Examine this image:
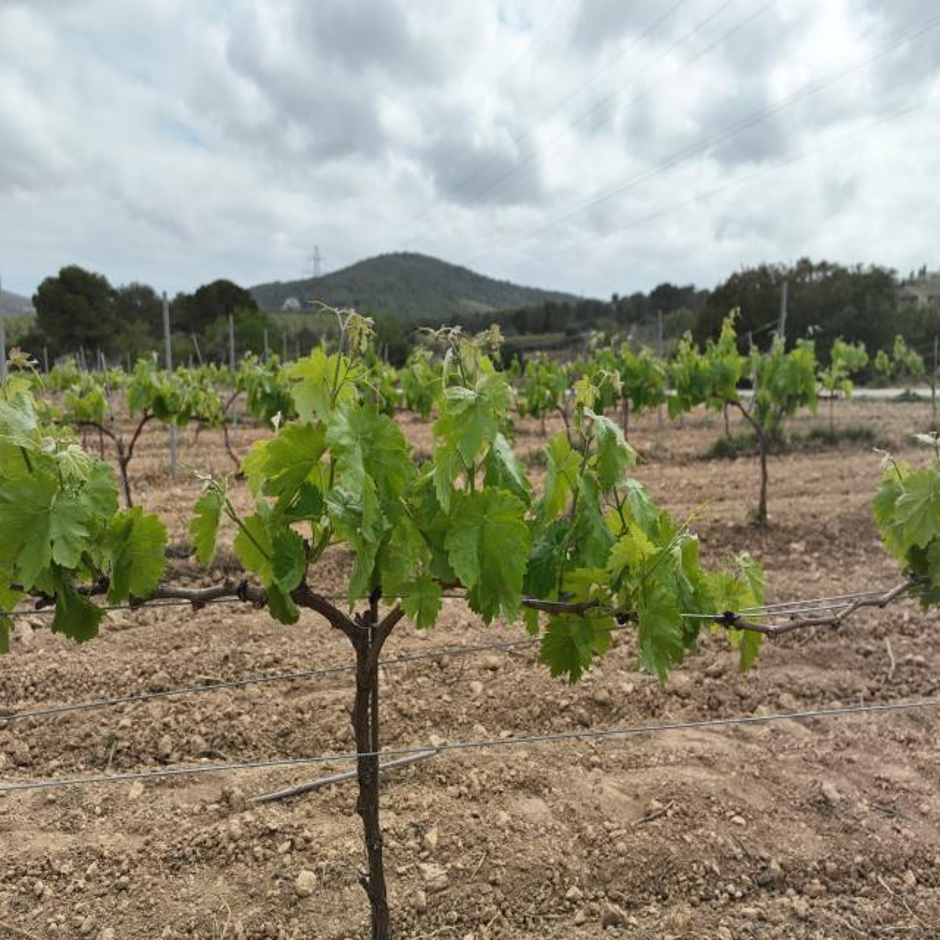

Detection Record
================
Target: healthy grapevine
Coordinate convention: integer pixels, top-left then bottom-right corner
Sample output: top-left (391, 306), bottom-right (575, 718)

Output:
top-left (0, 388), bottom-right (940, 939)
